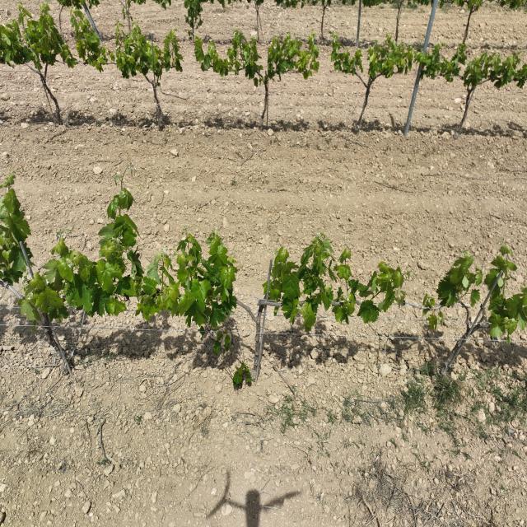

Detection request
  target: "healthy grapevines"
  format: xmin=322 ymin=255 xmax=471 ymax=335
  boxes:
xmin=138 ymin=227 xmax=382 ymax=396
xmin=381 ymin=240 xmax=527 ymax=389
xmin=0 ymin=173 xmax=136 ymax=380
